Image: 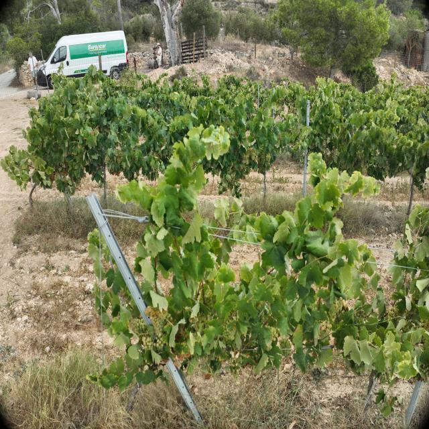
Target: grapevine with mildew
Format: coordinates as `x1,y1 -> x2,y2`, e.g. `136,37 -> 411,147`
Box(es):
85,179 -> 429,428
